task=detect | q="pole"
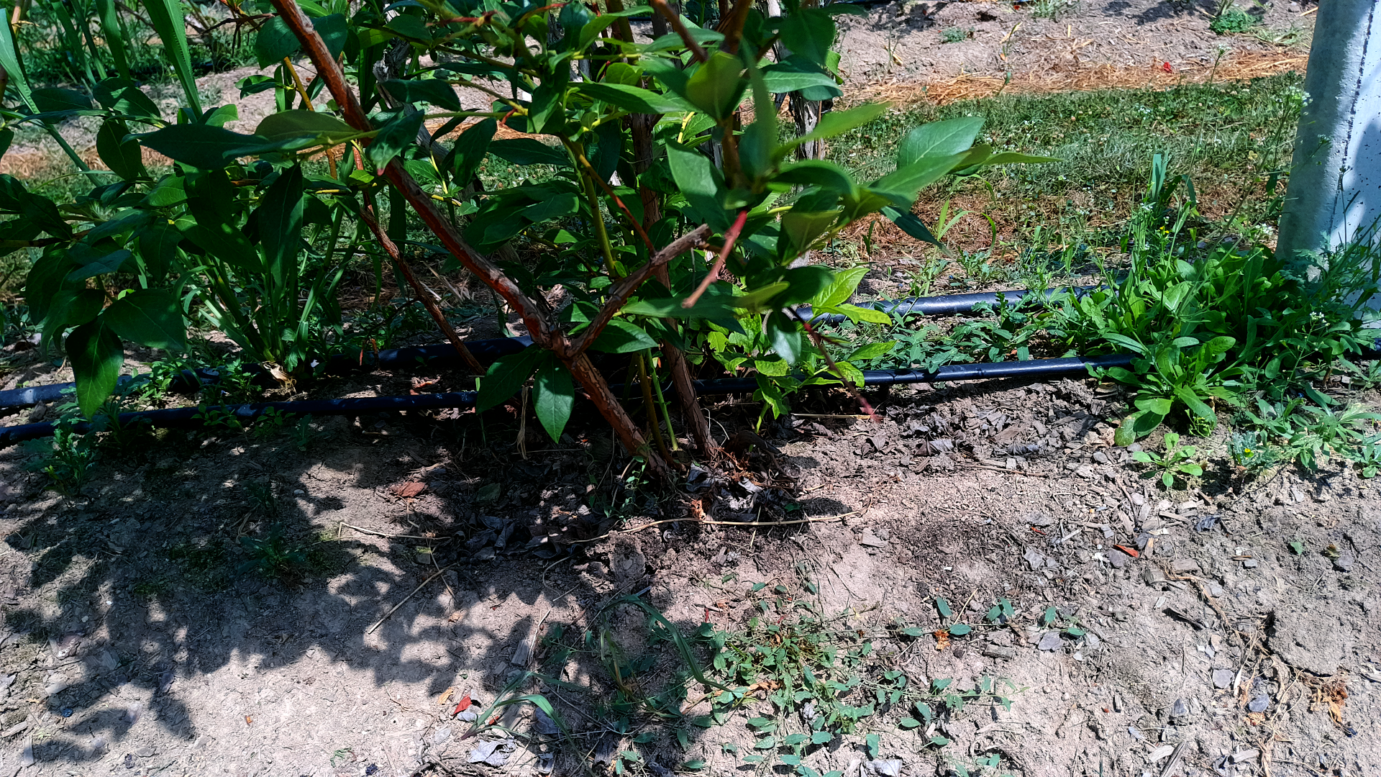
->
[1262,0,1381,322]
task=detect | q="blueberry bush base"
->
[393,191,797,546]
